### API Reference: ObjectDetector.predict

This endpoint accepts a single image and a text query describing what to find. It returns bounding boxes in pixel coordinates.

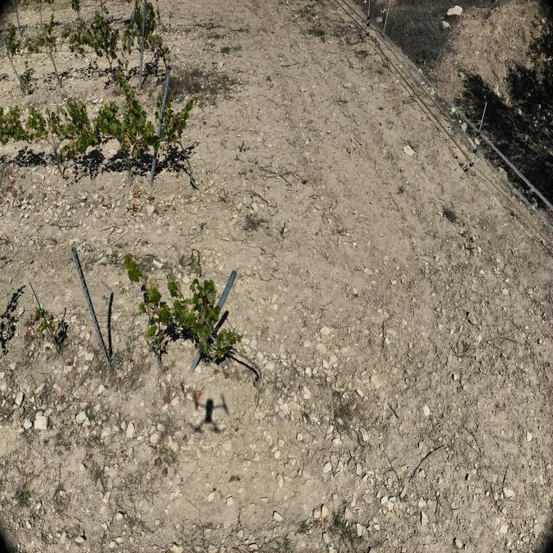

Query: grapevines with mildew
[122,251,259,381]
[25,301,76,364]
